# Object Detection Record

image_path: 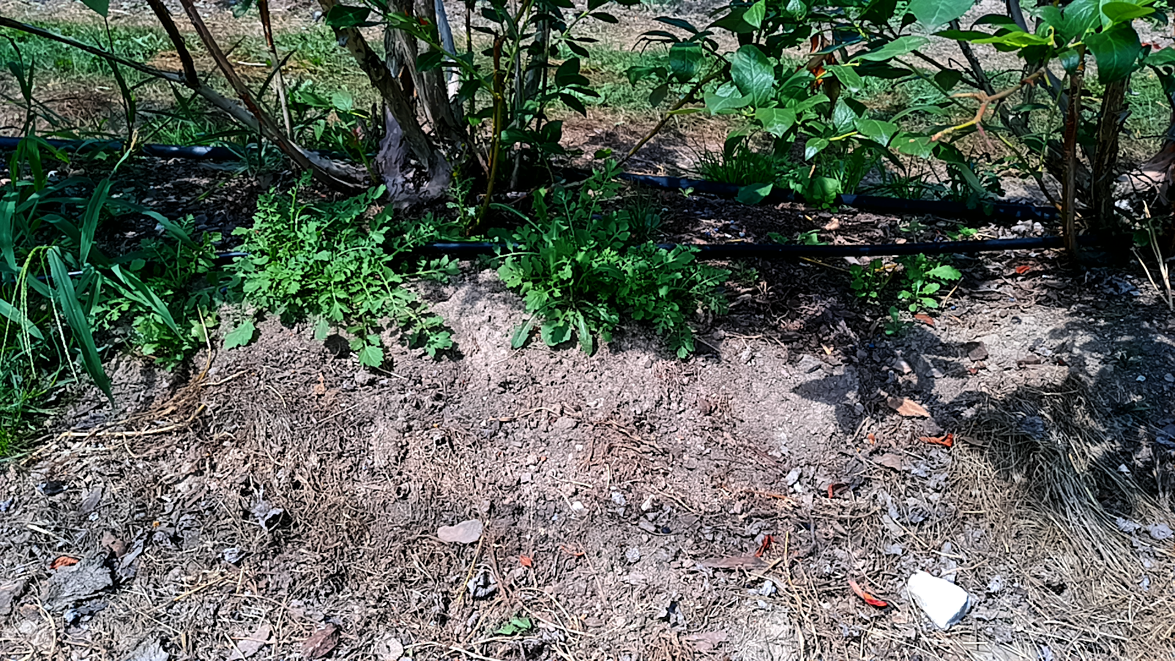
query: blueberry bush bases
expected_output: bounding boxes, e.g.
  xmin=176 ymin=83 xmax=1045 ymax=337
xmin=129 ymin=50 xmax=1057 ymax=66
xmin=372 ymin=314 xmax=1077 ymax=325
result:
xmin=1003 ymin=126 xmax=1173 ymax=306
xmin=274 ymin=67 xmax=573 ymax=278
